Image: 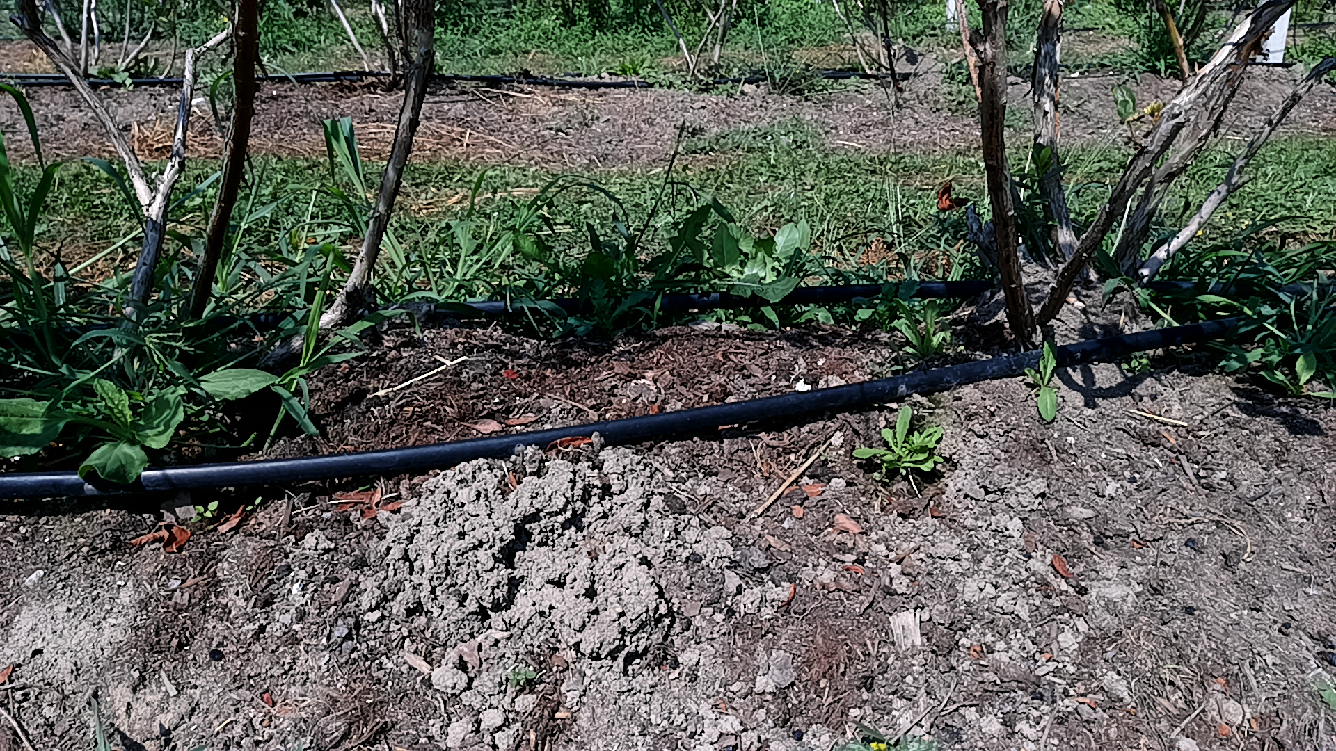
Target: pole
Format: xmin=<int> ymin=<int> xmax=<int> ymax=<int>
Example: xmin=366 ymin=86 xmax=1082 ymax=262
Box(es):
xmin=1265 ymin=4 xmax=1291 ymax=58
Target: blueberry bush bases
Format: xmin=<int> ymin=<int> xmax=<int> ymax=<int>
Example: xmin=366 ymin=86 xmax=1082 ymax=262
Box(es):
xmin=948 ymin=153 xmax=1241 ymax=405
xmin=664 ymin=38 xmax=749 ymax=102
xmin=38 ymin=35 xmax=140 ymax=102
xmin=34 ymin=199 xmax=417 ymax=504
xmin=340 ymin=38 xmax=448 ymax=96
xmin=843 ymin=29 xmax=930 ymax=93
